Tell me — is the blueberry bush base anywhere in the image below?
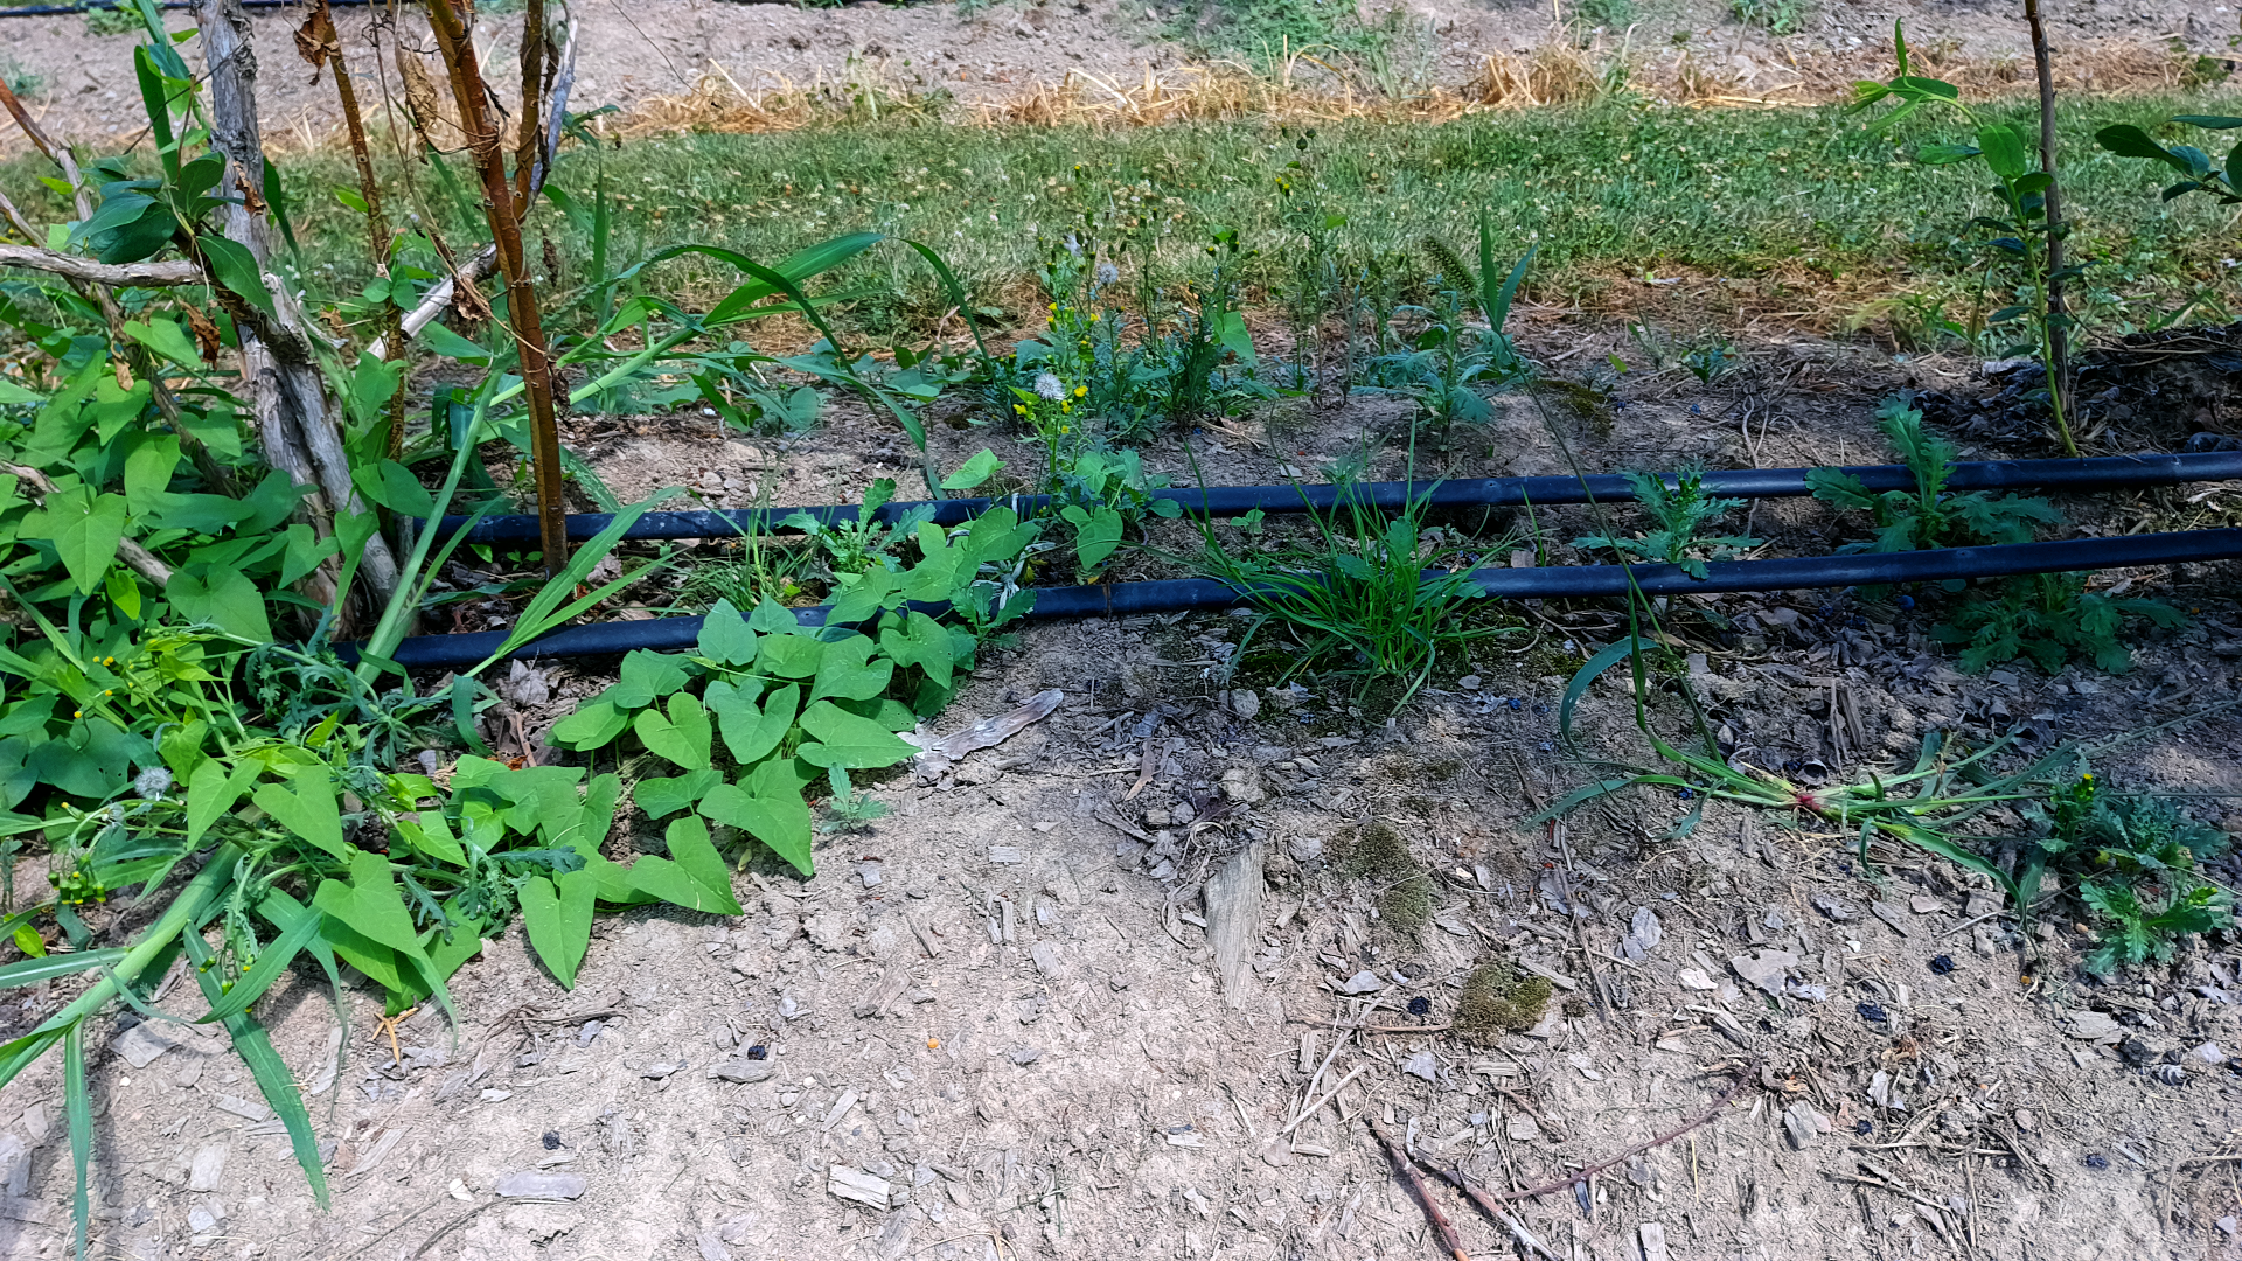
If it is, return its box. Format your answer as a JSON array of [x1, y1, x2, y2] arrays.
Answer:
[[49, 257, 611, 864]]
